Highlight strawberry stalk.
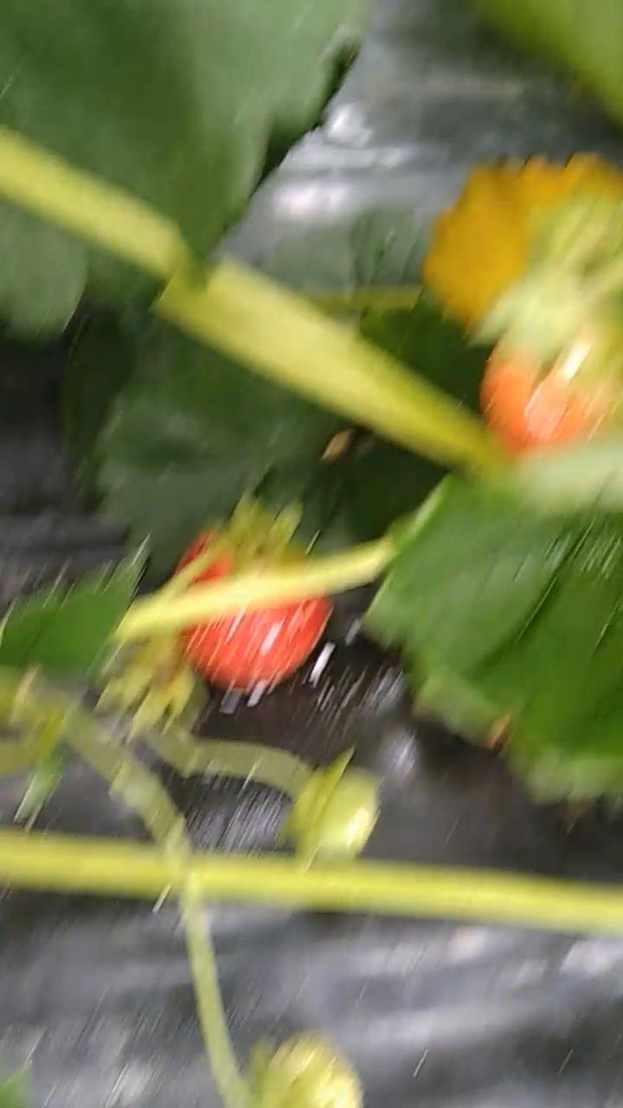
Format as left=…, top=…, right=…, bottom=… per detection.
left=236, top=736, right=320, bottom=801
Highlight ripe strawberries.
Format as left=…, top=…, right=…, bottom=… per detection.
left=188, top=530, right=338, bottom=694
left=472, top=312, right=623, bottom=462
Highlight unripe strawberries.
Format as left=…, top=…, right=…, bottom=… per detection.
left=279, top=762, right=398, bottom=856
left=240, top=1028, right=361, bottom=1106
